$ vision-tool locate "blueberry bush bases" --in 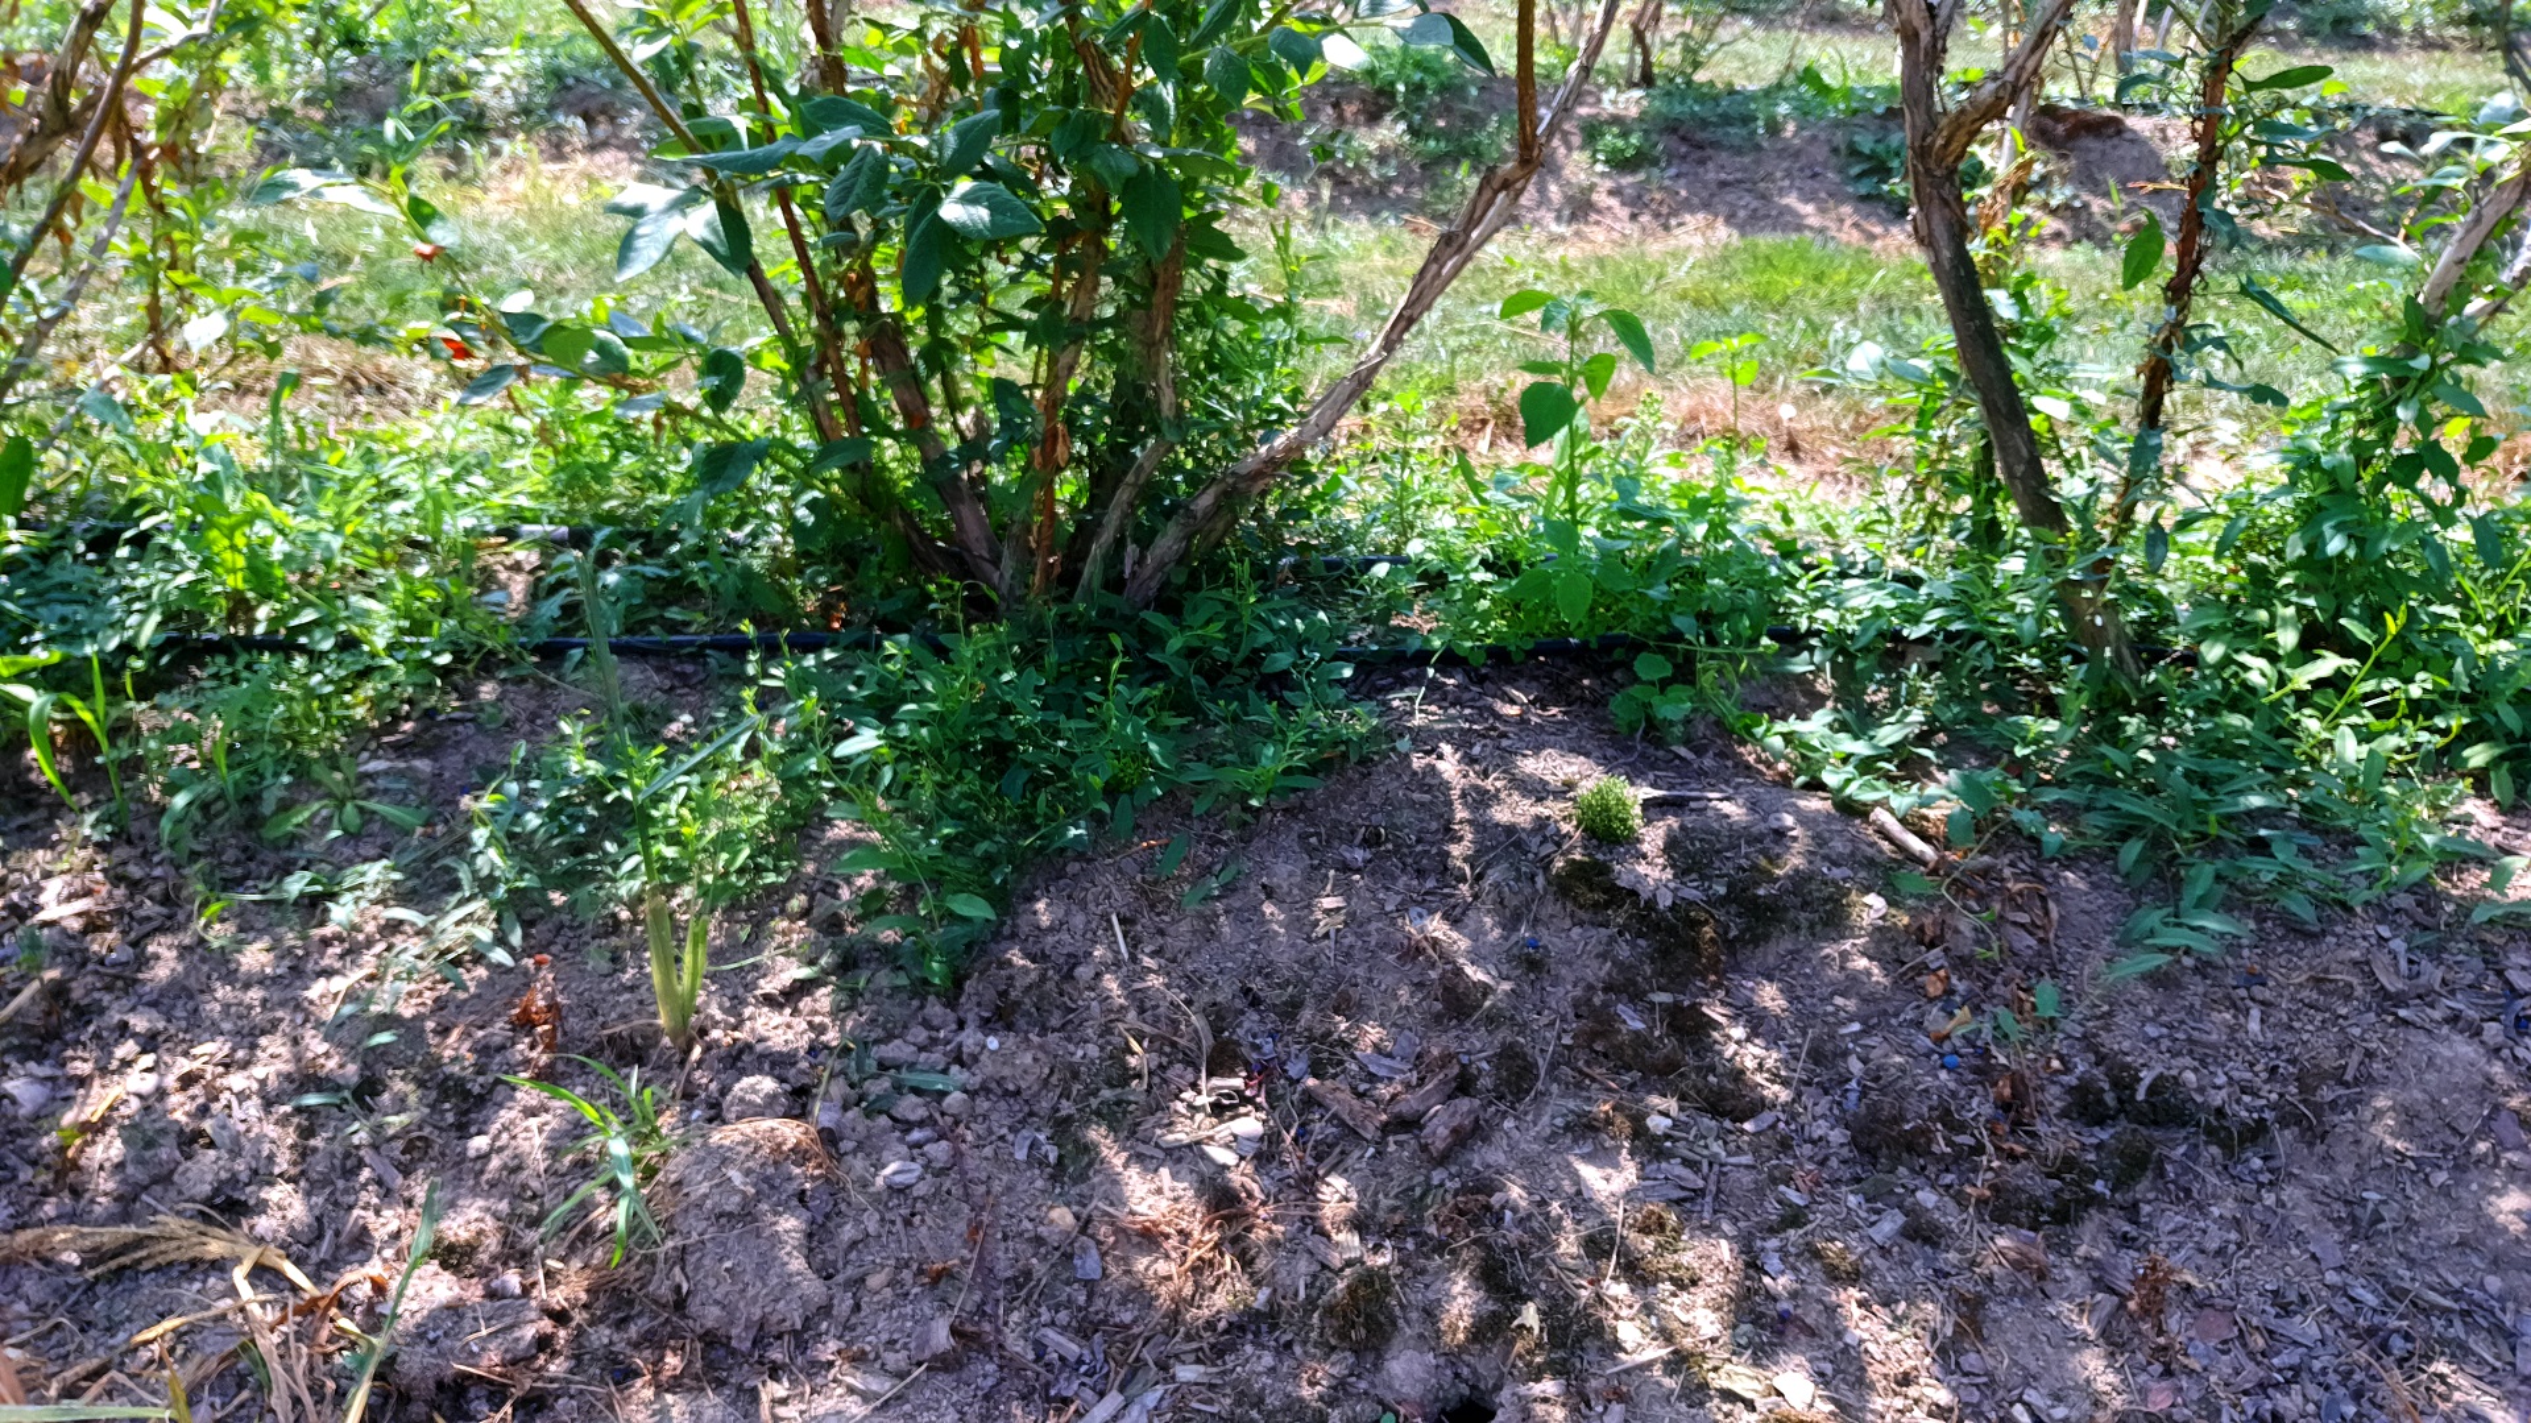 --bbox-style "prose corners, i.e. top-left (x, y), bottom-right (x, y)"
top-left (1915, 348), bottom-right (2491, 849)
top-left (755, 318), bottom-right (1403, 771)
